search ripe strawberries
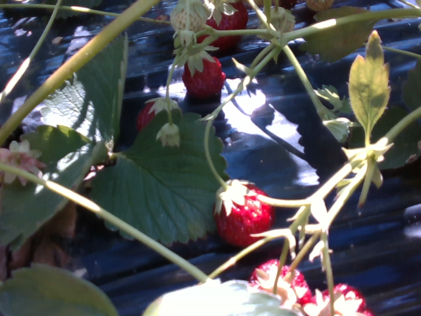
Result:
[138,99,185,139]
[218,183,279,244]
[307,289,374,316]
[252,265,308,306]
[182,55,227,99]
[196,0,245,45]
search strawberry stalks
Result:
[203,145,235,199]
[164,64,175,111]
[323,250,340,316]
[269,246,288,299]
